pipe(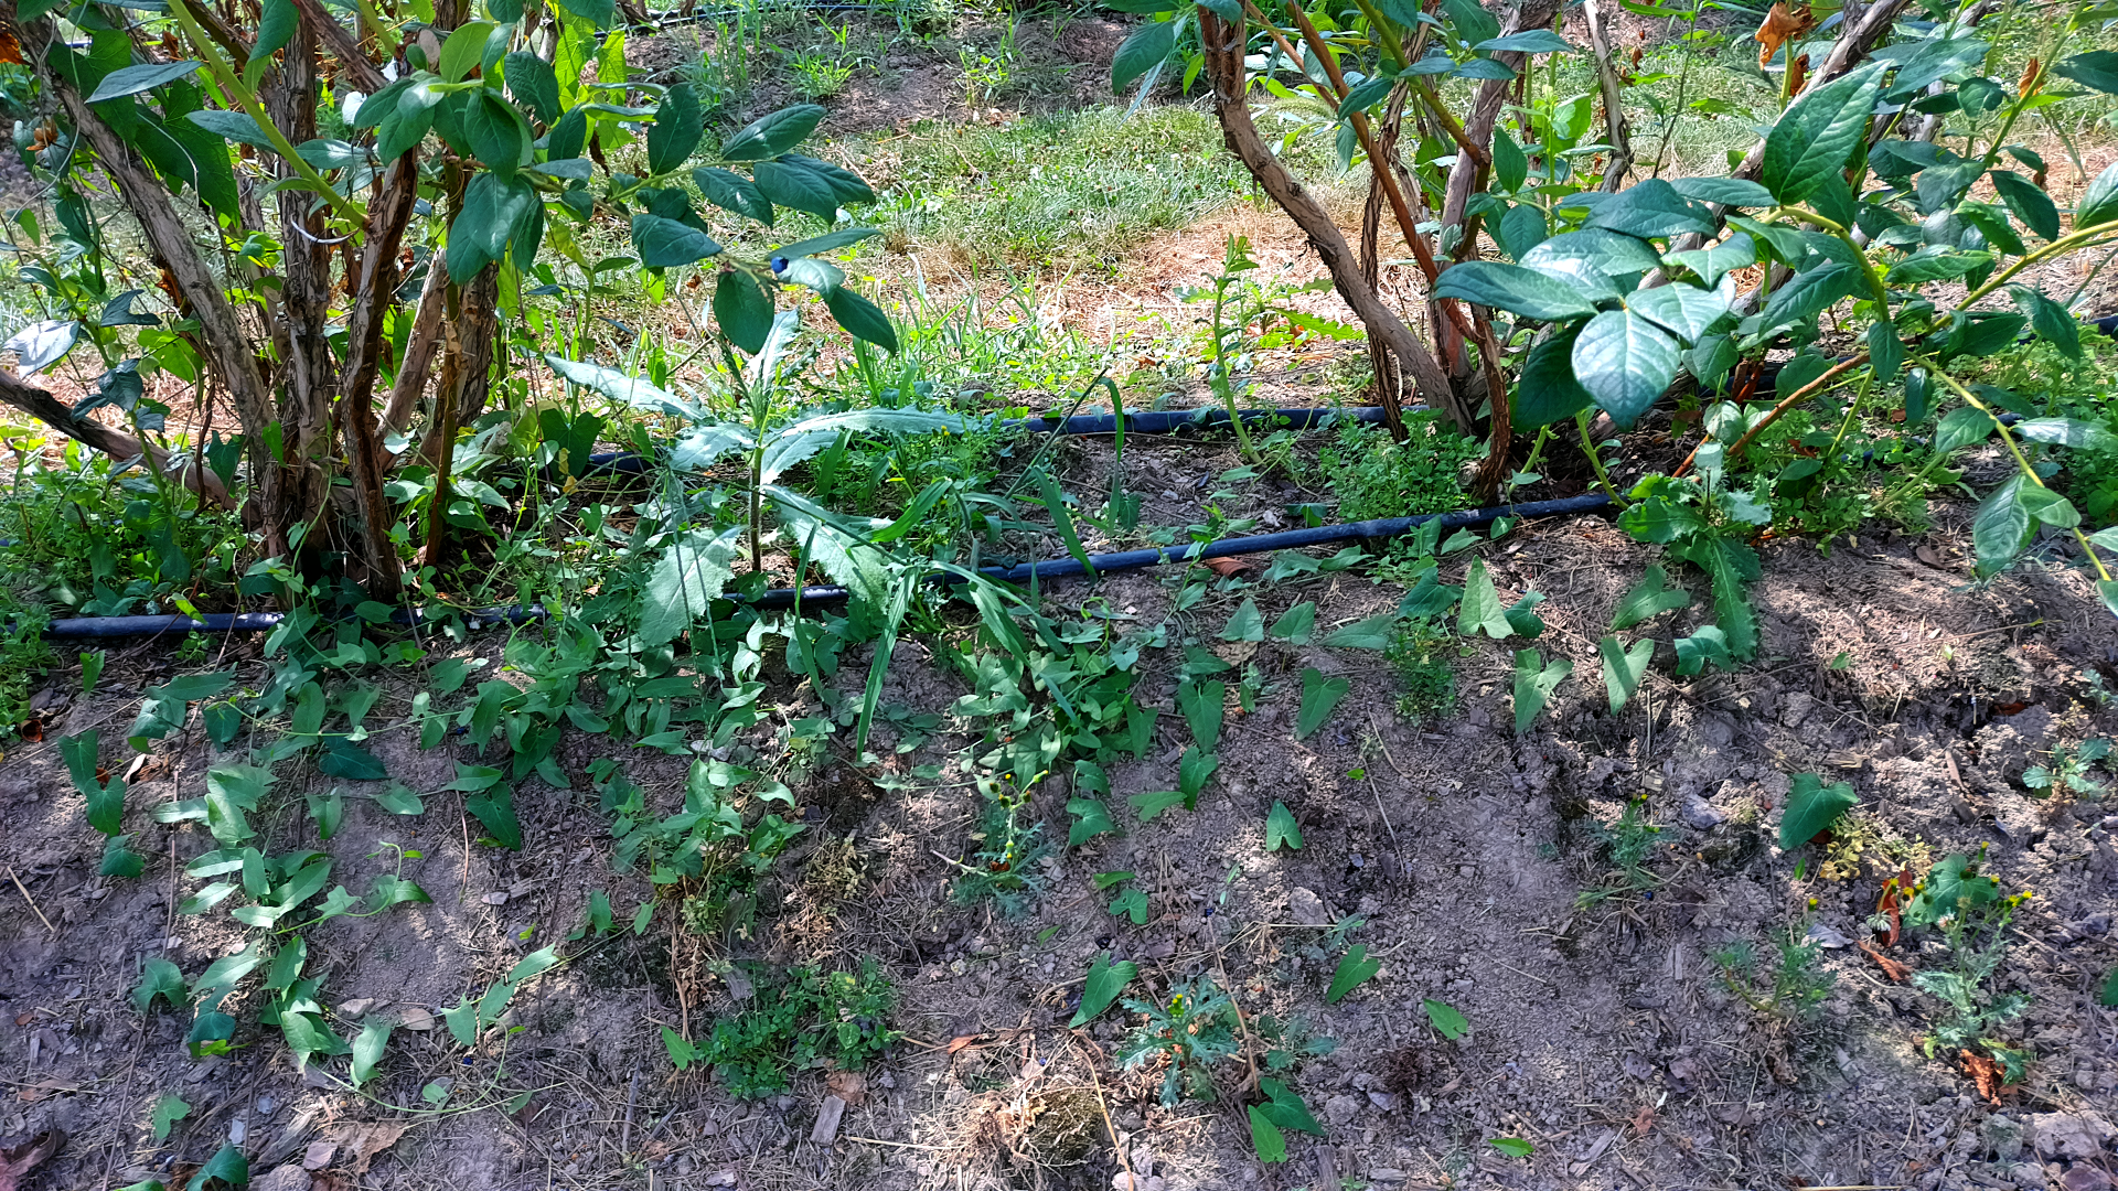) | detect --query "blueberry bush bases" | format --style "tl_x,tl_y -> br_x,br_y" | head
1251,167 -> 1922,663
64,324 -> 564,742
